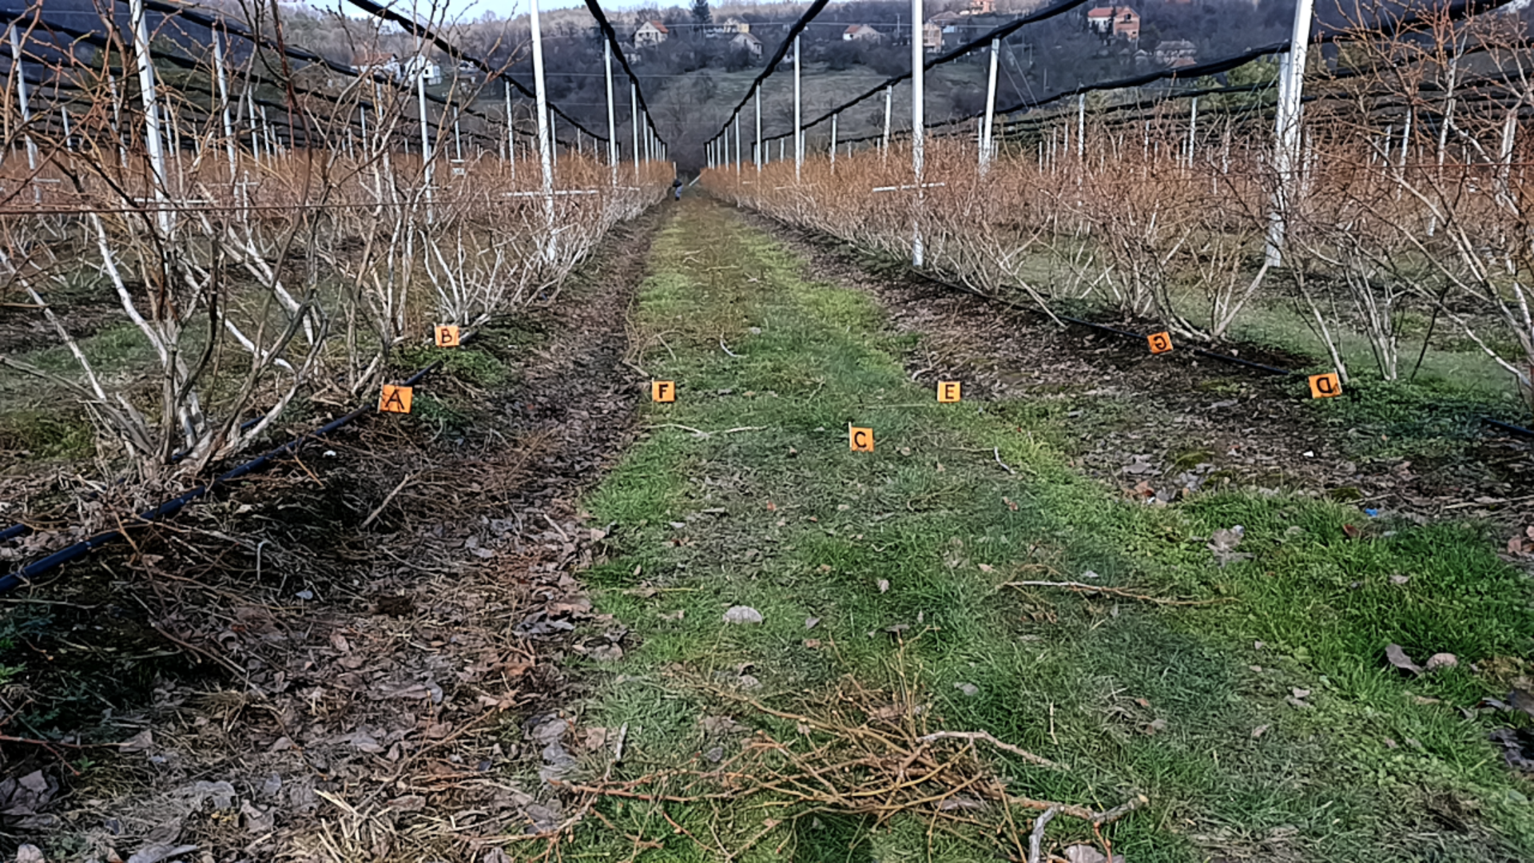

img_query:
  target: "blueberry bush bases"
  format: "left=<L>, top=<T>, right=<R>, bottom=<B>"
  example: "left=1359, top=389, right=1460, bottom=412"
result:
left=1320, top=328, right=1437, bottom=422
left=364, top=296, right=477, bottom=370
left=1161, top=291, right=1266, bottom=367
left=955, top=251, right=1012, bottom=306
left=1021, top=262, right=1102, bottom=320
left=1083, top=273, right=1177, bottom=345
left=432, top=285, right=508, bottom=344
left=277, top=339, right=403, bottom=431
left=58, top=379, right=289, bottom=571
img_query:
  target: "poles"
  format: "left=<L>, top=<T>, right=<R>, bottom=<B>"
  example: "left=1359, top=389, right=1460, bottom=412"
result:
left=1264, top=1, right=1316, bottom=267
left=906, top=2, right=931, bottom=273
left=525, top=2, right=560, bottom=259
